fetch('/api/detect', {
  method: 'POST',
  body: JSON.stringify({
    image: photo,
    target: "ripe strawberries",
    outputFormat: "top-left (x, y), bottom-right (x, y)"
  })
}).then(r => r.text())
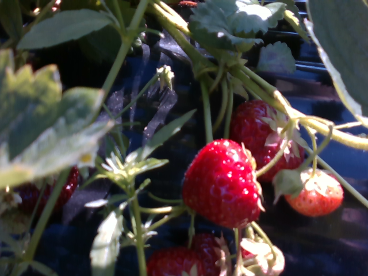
top-left (286, 172), bottom-right (341, 217)
top-left (177, 141), bottom-right (269, 229)
top-left (233, 99), bottom-right (300, 168)
top-left (143, 251), bottom-right (206, 275)
top-left (193, 236), bottom-right (232, 276)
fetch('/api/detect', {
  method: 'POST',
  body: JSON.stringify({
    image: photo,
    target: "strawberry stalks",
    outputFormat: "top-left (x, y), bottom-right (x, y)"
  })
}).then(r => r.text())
top-left (237, 139), bottom-right (296, 181)
top-left (270, 114), bottom-right (330, 135)
top-left (310, 133), bottom-right (316, 192)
